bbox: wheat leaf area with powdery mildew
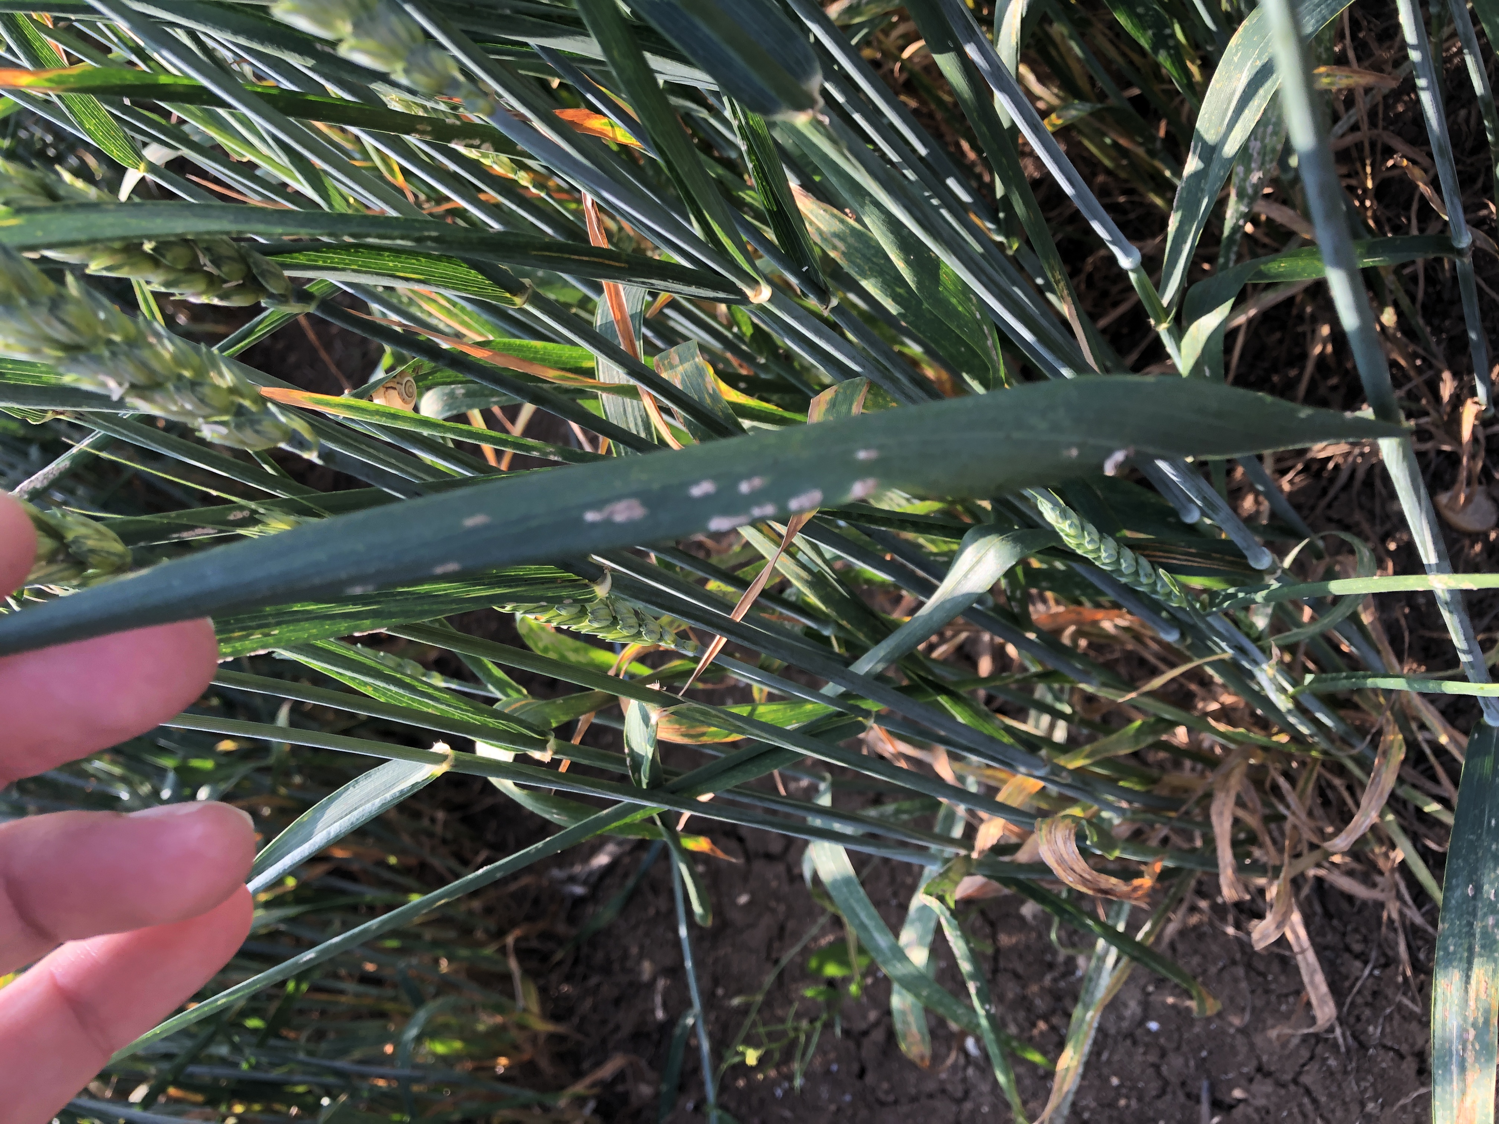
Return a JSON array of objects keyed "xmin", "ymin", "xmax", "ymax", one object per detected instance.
[{"xmin": 354, "ymin": 395, "xmax": 1228, "ymax": 610}]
